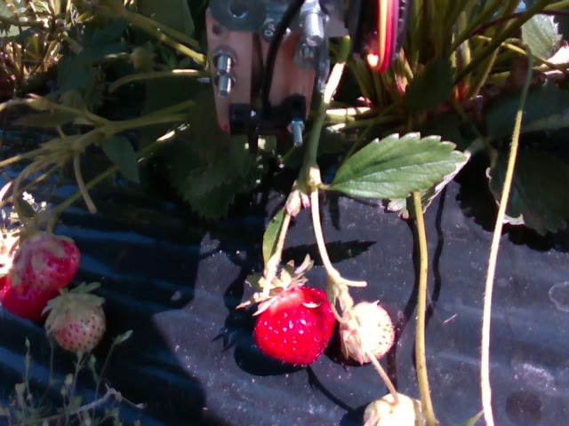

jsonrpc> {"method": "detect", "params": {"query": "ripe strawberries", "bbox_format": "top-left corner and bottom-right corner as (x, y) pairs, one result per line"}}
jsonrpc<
(2, 269), (55, 316)
(257, 288), (335, 365)
(25, 238), (83, 288)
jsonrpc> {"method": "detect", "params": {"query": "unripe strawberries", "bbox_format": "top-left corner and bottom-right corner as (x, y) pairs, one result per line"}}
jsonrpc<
(363, 397), (426, 426)
(335, 306), (387, 353)
(49, 295), (101, 351)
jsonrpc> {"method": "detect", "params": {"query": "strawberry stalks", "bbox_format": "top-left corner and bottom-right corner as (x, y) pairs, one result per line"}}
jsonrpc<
(8, 195), (50, 254)
(269, 207), (297, 304)
(309, 206), (360, 327)
(358, 348), (406, 416)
